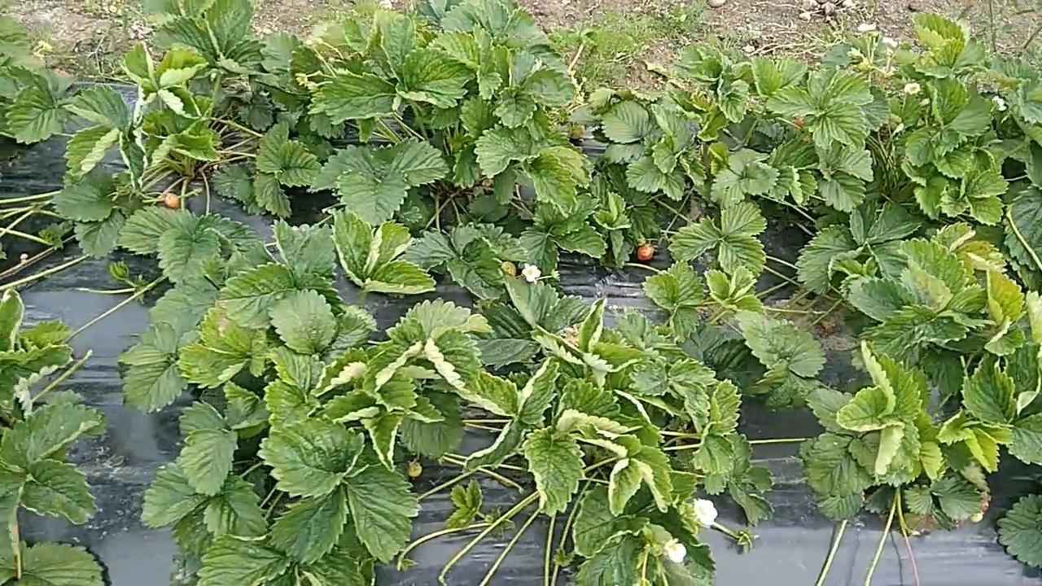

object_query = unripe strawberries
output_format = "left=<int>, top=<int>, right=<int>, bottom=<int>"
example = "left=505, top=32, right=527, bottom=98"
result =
left=407, top=463, right=424, bottom=478
left=164, top=194, right=180, bottom=208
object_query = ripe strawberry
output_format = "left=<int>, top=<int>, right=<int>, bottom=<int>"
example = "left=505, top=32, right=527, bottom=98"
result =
left=637, top=245, right=656, bottom=261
